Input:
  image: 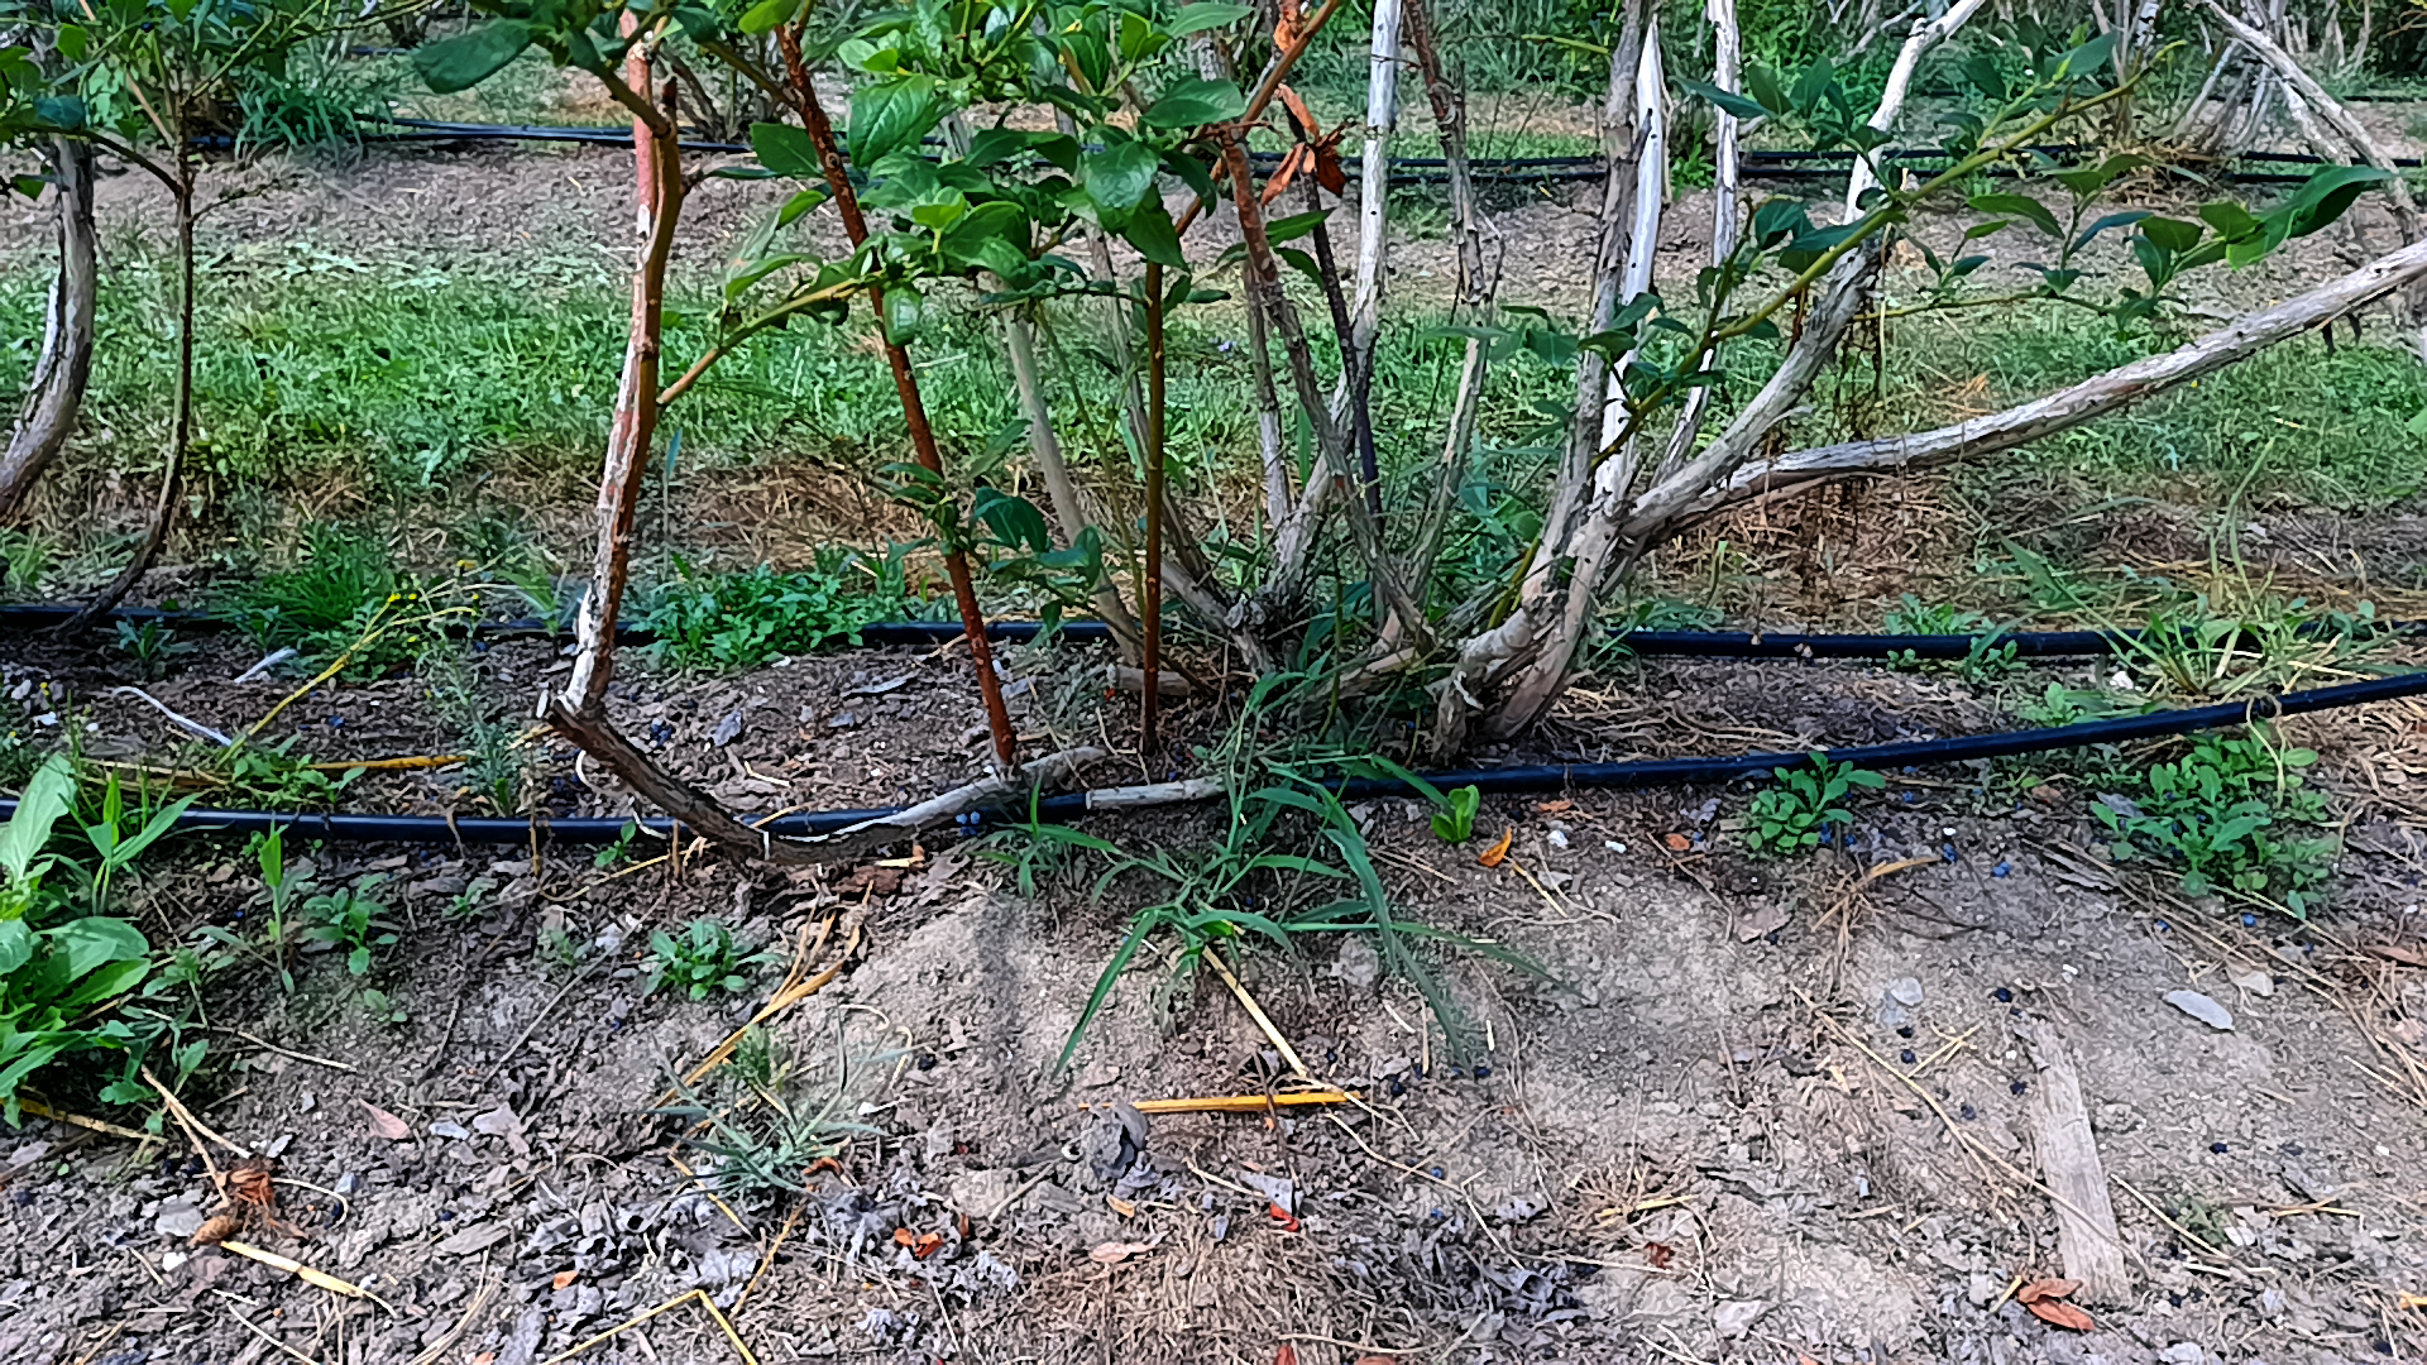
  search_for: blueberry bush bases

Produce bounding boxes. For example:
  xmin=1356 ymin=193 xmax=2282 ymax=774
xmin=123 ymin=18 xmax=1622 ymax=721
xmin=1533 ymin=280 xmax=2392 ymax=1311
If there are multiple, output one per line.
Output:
xmin=0 ymin=320 xmax=221 ymax=742
xmin=971 ymin=374 xmax=1801 ymax=861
